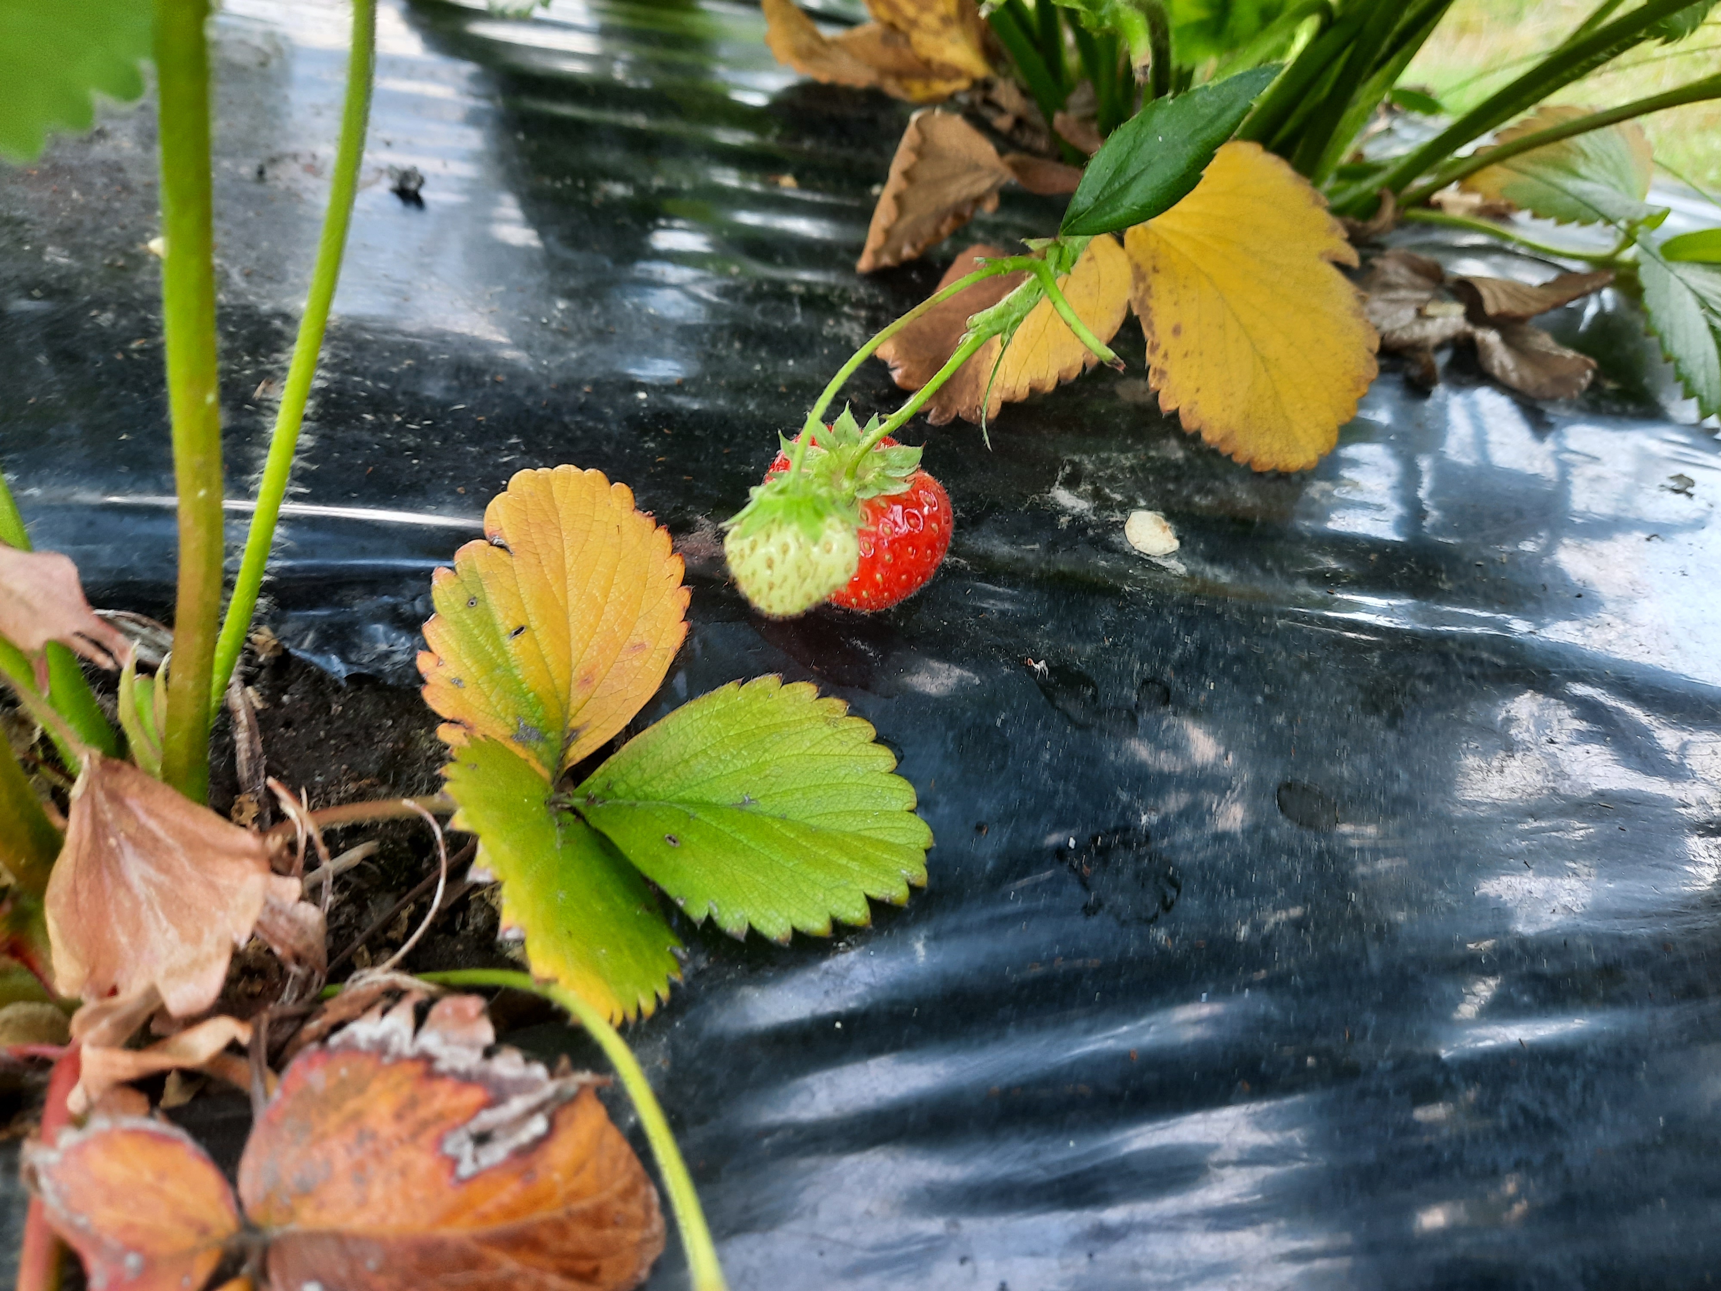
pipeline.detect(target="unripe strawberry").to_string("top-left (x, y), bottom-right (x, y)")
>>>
top-left (732, 501), bottom-right (845, 617)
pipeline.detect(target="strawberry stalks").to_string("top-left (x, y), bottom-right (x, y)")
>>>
top-left (832, 332), bottom-right (967, 489)
top-left (772, 346), bottom-right (863, 504)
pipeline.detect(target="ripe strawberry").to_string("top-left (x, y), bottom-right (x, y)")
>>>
top-left (756, 447), bottom-right (948, 619)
